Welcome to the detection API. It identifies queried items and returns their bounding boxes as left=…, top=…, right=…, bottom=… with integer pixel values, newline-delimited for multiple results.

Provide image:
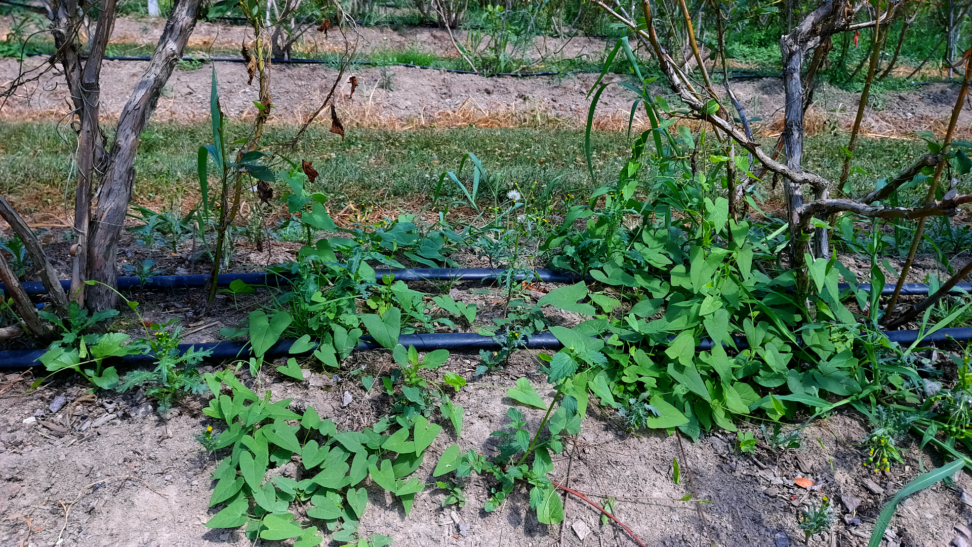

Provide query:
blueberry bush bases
left=415, top=6, right=471, bottom=37
left=0, top=183, right=213, bottom=418
left=259, top=29, right=307, bottom=76
left=666, top=155, right=954, bottom=404
left=436, top=36, right=531, bottom=90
